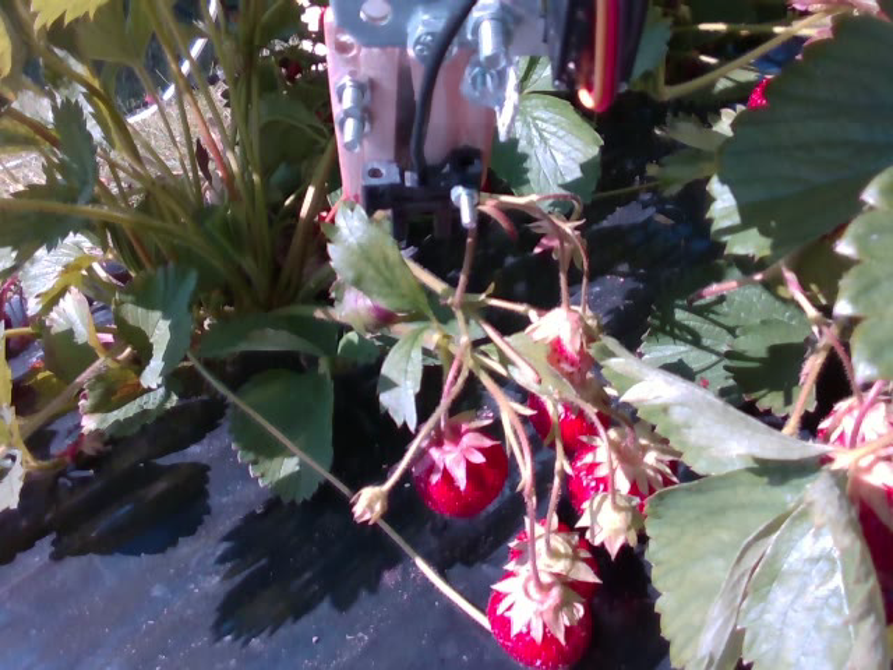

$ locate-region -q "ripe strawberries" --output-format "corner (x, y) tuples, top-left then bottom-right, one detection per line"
(538, 308), (592, 372)
(811, 380), (893, 462)
(574, 435), (680, 524)
(522, 376), (613, 444)
(418, 425), (512, 517)
(507, 524), (592, 592)
(492, 575), (581, 666)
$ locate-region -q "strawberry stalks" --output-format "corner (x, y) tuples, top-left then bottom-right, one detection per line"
(521, 483), (554, 609)
(576, 393), (647, 473)
(436, 354), (460, 461)
(549, 254), (578, 351)
(822, 331), (868, 406)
